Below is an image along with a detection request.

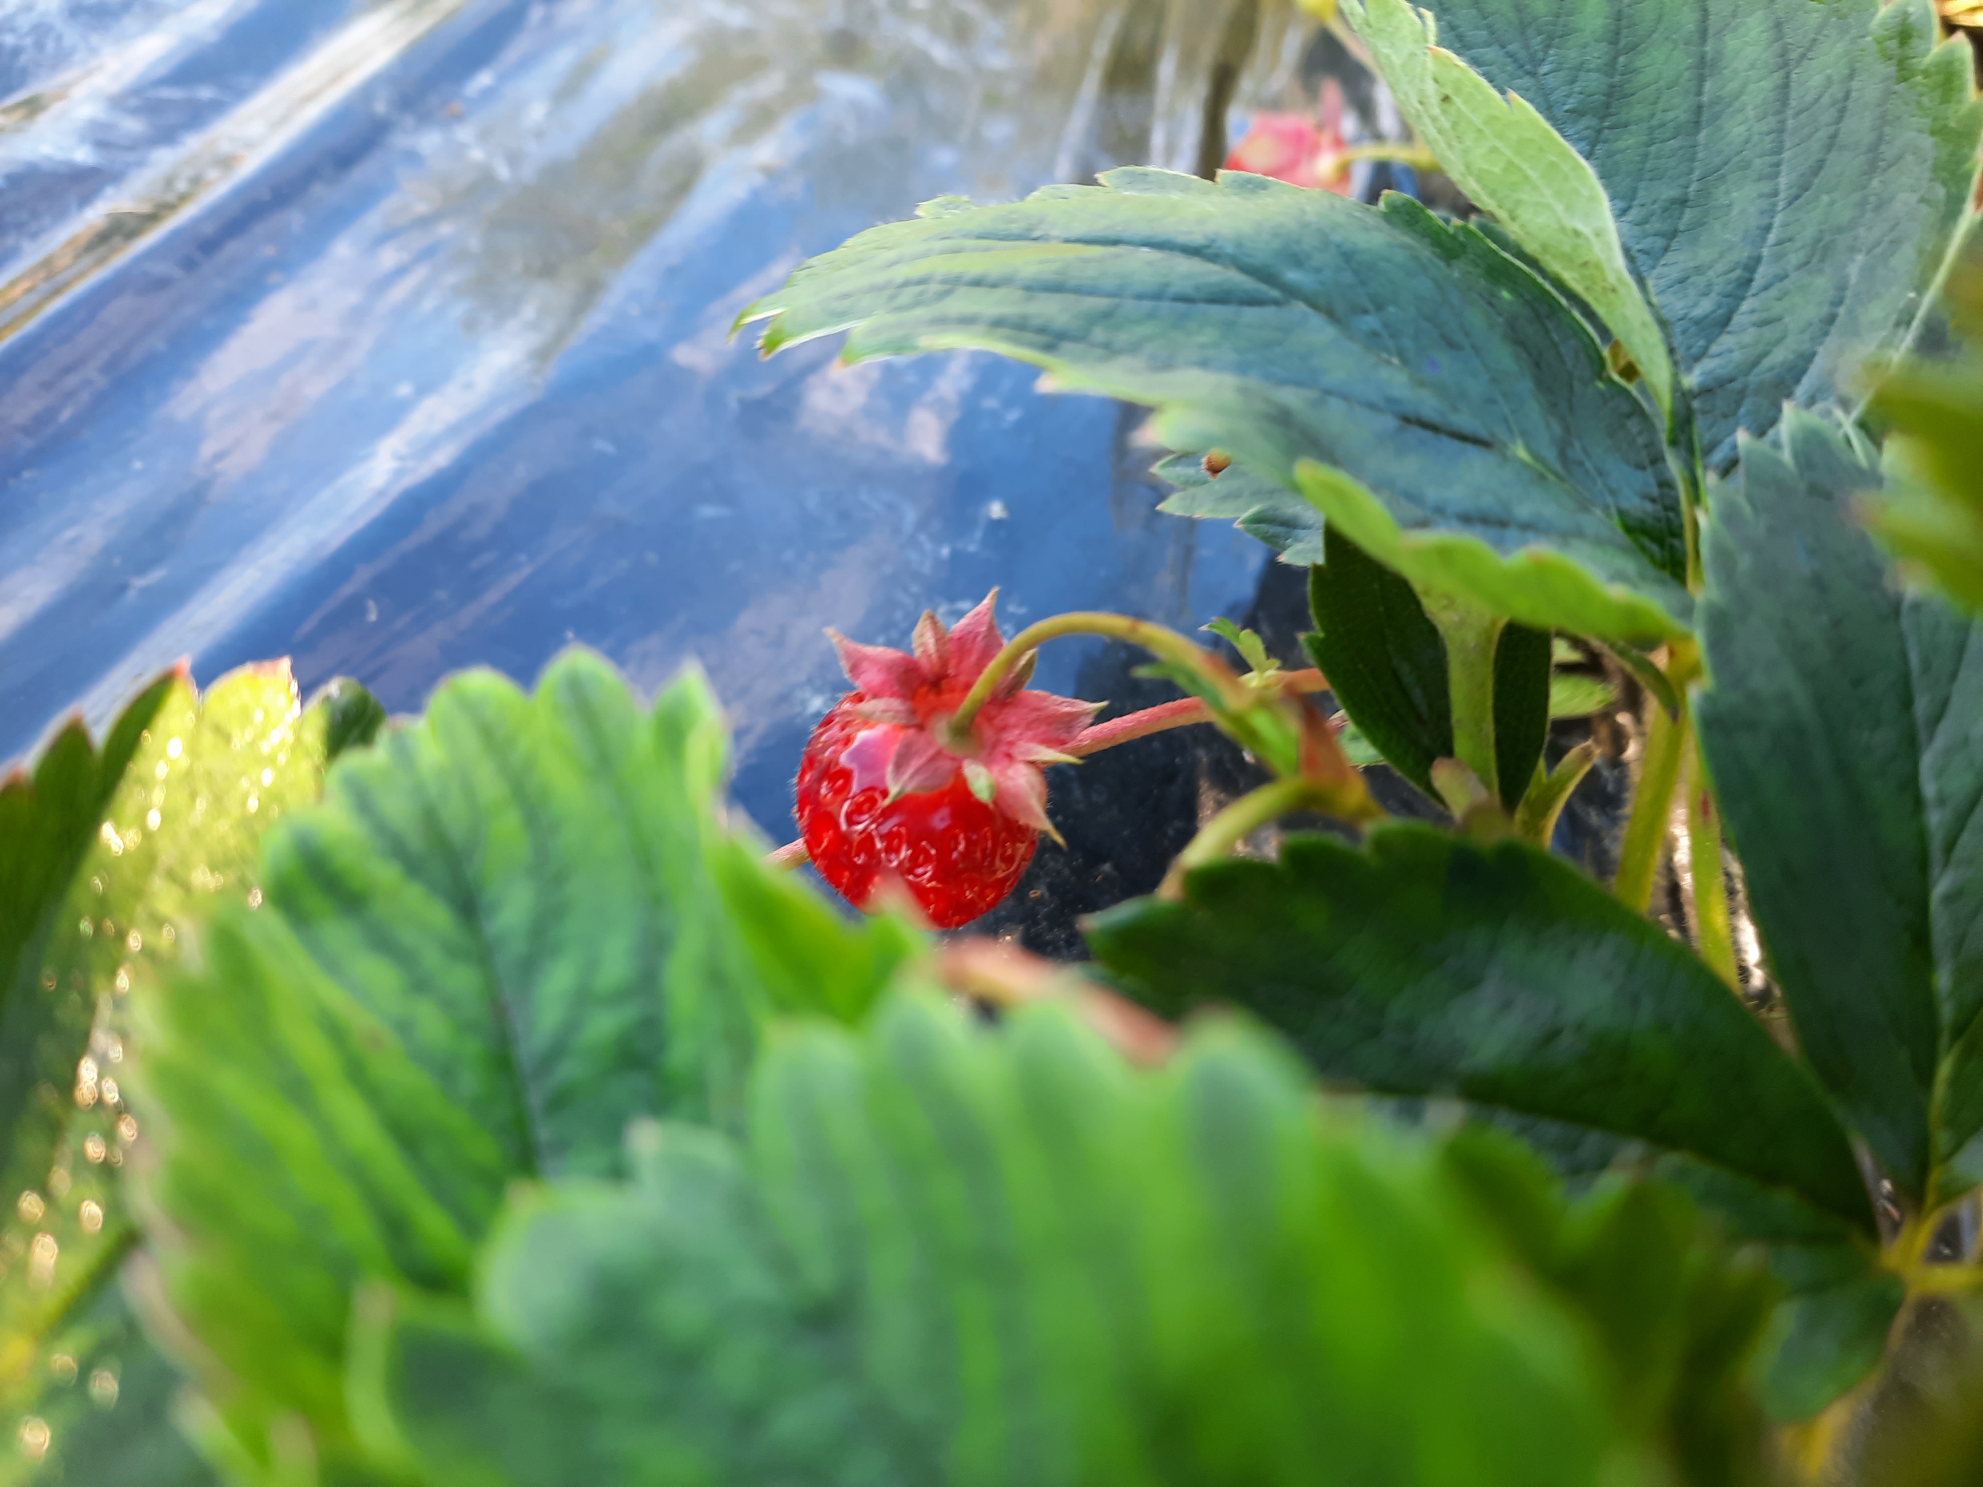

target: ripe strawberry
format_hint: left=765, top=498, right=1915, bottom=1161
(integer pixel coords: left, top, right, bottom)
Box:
left=781, top=678, right=1041, bottom=923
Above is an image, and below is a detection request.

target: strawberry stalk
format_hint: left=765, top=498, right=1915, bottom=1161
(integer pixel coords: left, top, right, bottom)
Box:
left=917, top=616, right=1244, bottom=773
